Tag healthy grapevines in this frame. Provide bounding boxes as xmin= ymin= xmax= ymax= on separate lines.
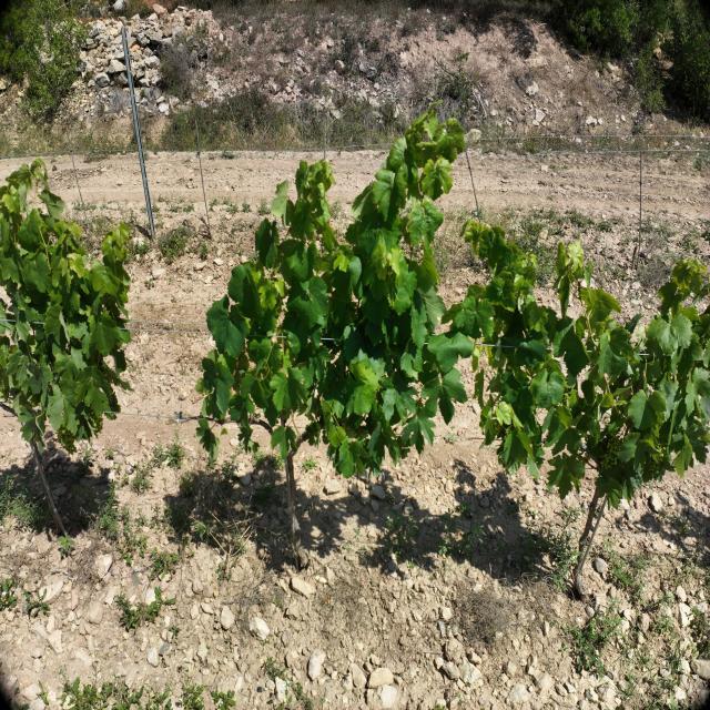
xmin=468 ymin=221 xmax=710 ymax=622
xmin=0 ymin=149 xmax=144 ymax=559
xmin=194 ymin=101 xmax=476 ymax=599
